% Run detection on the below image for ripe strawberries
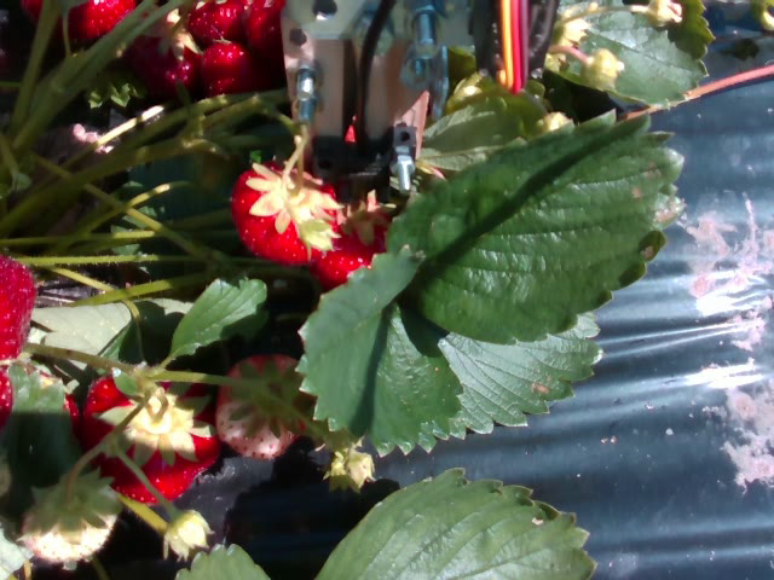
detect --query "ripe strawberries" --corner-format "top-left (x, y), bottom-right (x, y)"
top-left (239, 177), bottom-right (341, 256)
top-left (135, 29), bottom-right (198, 90)
top-left (195, 43), bottom-right (255, 95)
top-left (49, 0), bottom-right (143, 38)
top-left (181, 1), bottom-right (237, 36)
top-left (215, 357), bottom-right (315, 456)
top-left (81, 387), bottom-right (231, 500)
top-left (323, 209), bottom-right (400, 277)
top-left (0, 257), bottom-right (44, 360)
top-left (0, 369), bottom-right (78, 450)
top-left (234, 0), bottom-right (291, 46)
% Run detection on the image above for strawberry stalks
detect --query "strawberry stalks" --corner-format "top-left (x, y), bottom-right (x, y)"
top-left (123, 364), bottom-right (176, 426)
top-left (277, 125), bottom-right (317, 202)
